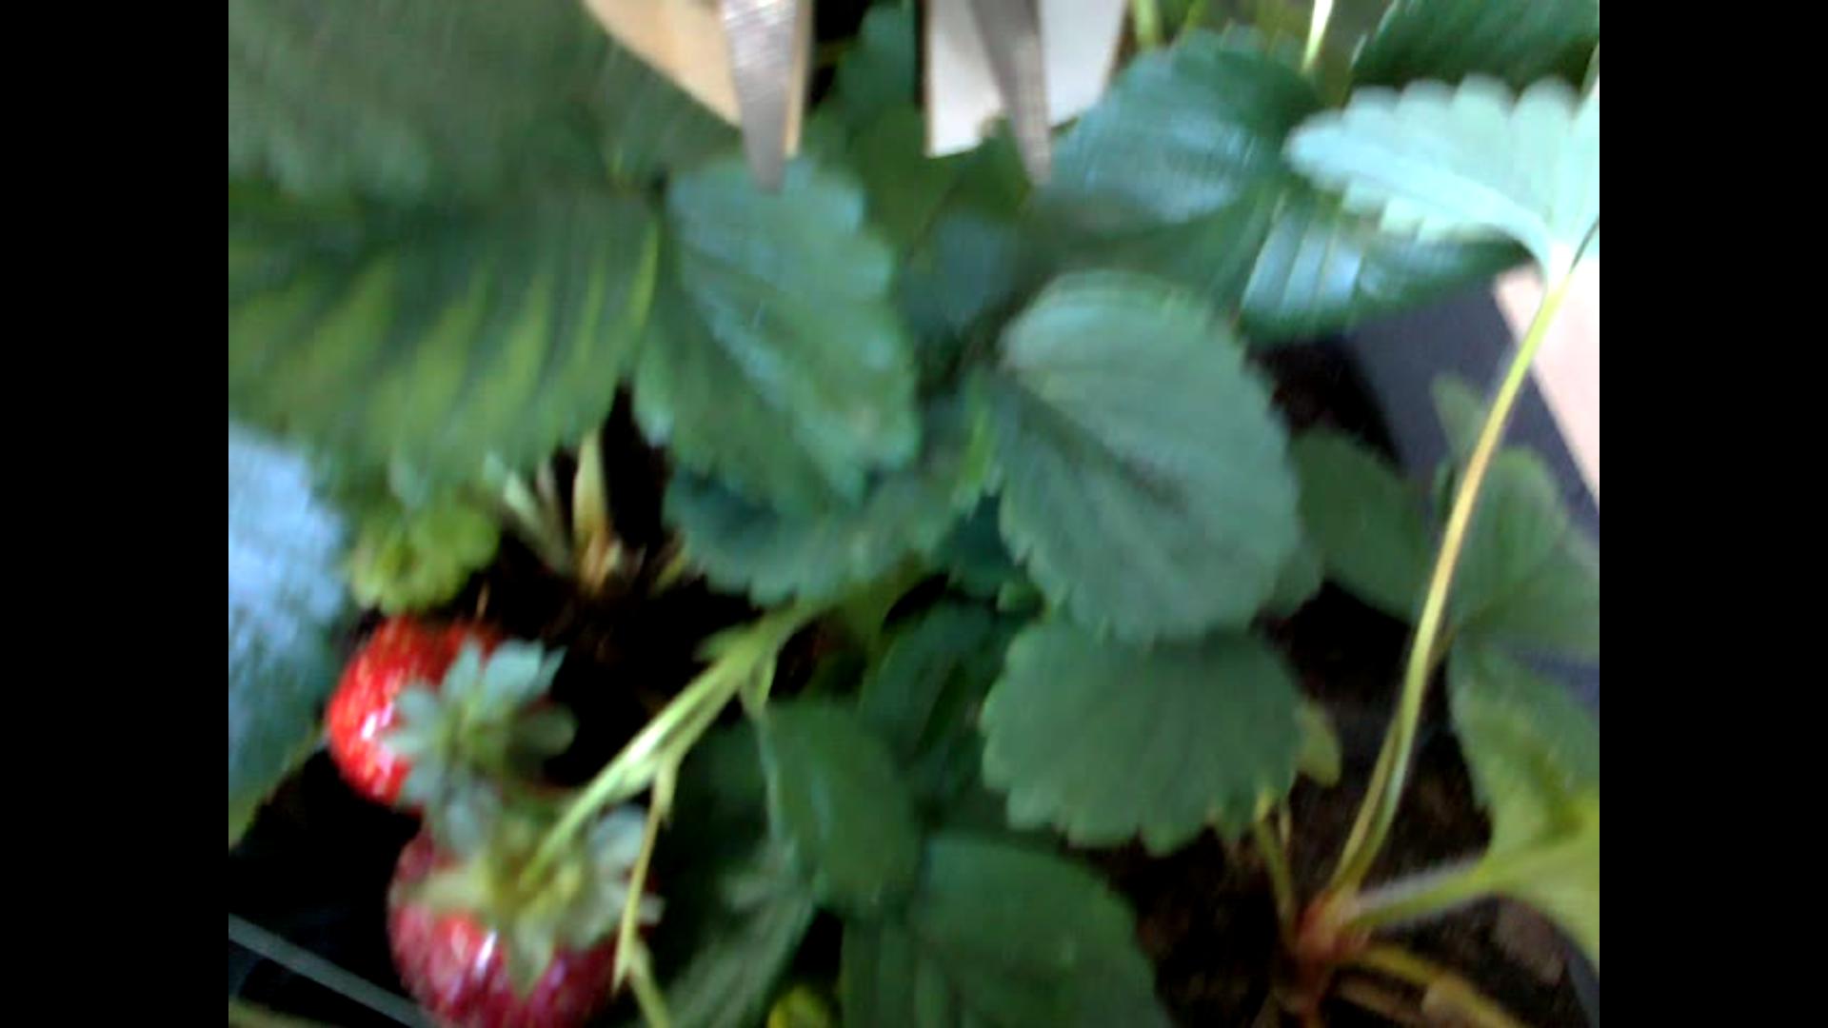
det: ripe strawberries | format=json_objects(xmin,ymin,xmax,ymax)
[
  {"xmin": 282, "ymin": 616, "xmax": 519, "ymax": 806},
  {"xmin": 356, "ymin": 801, "xmax": 731, "ymax": 1024}
]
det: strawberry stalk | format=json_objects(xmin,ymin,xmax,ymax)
[{"xmin": 472, "ymin": 642, "xmax": 763, "ymax": 947}]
